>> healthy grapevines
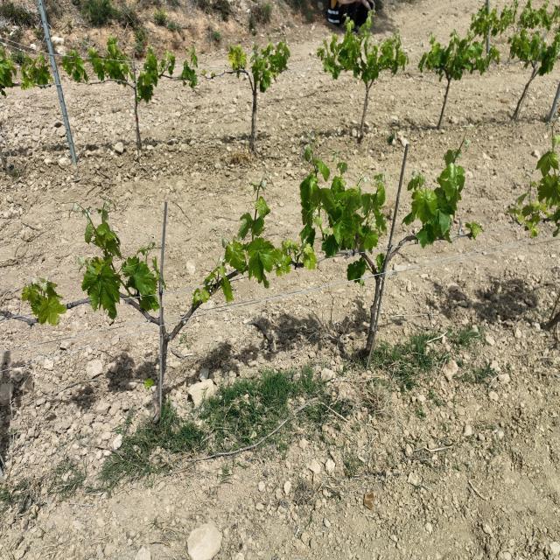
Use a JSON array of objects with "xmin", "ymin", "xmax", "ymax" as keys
[
  {"xmin": 17, "ymin": 184, "xmax": 301, "ymax": 448},
  {"xmin": 293, "ymin": 140, "xmax": 480, "ymax": 390}
]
